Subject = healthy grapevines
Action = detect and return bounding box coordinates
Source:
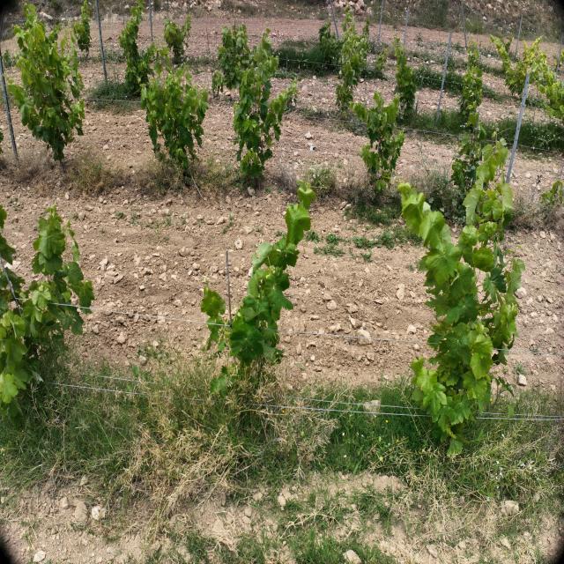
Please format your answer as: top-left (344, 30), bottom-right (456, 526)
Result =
top-left (0, 198), bottom-right (100, 448)
top-left (198, 173), bottom-right (323, 428)
top-left (394, 137), bottom-right (531, 470)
